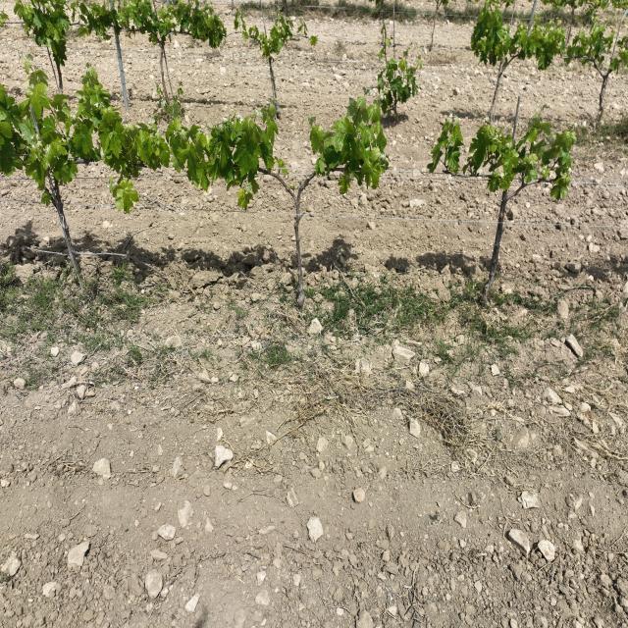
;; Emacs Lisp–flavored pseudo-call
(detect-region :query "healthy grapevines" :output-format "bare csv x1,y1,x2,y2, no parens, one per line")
0,65,163,304
426,105,578,313
163,107,399,305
